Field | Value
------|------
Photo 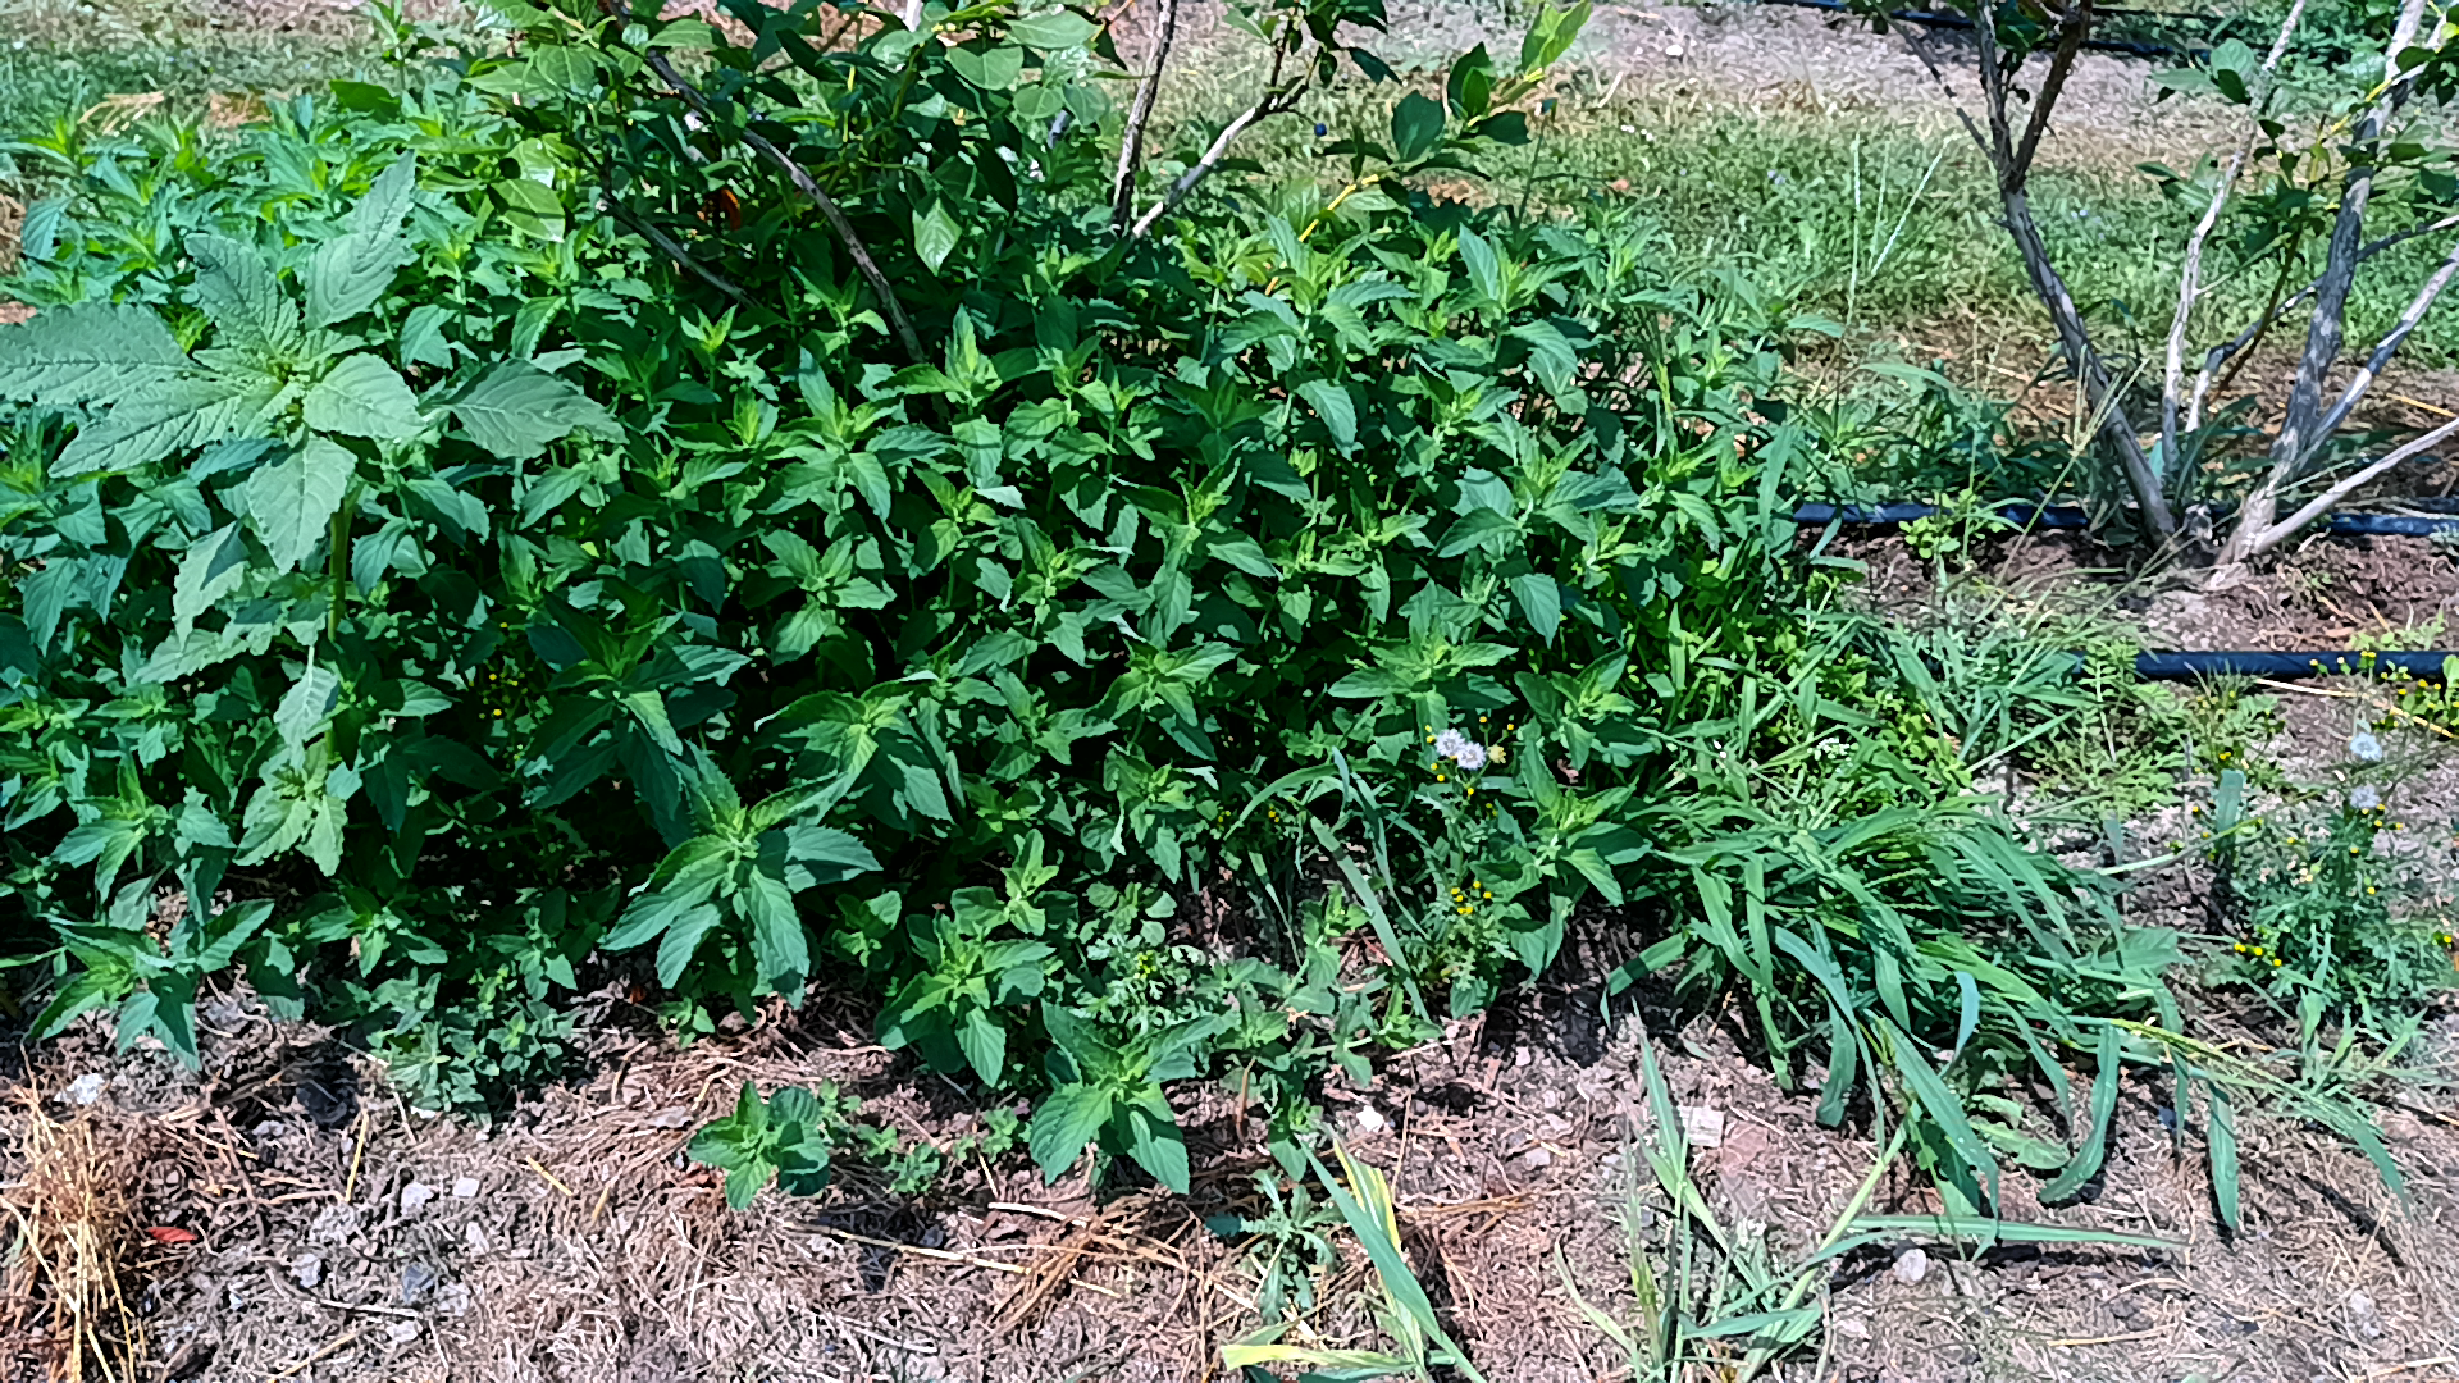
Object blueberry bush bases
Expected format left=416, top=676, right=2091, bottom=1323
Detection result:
left=631, top=22, right=1268, bottom=572
left=1967, top=255, right=2427, bottom=666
